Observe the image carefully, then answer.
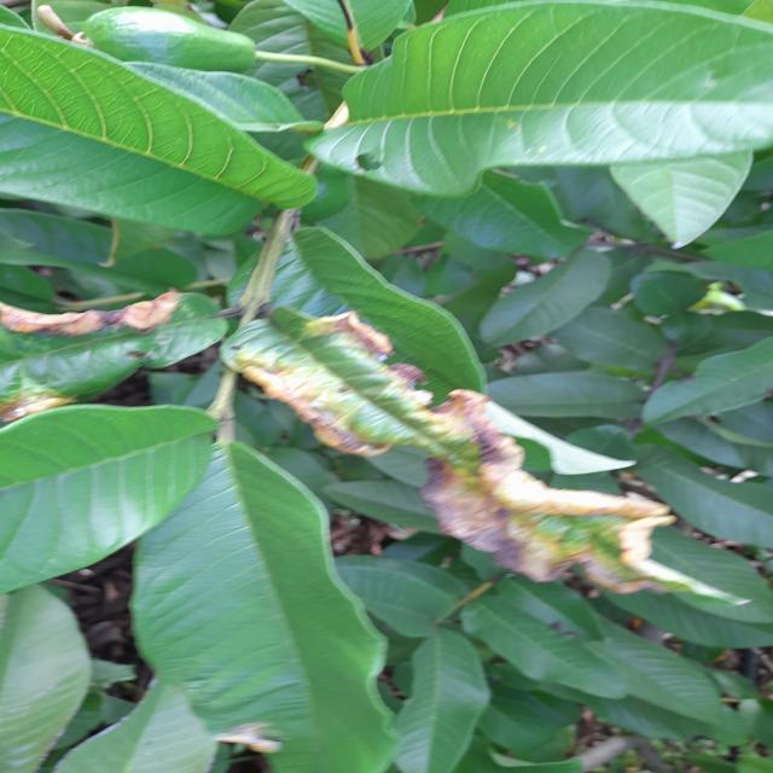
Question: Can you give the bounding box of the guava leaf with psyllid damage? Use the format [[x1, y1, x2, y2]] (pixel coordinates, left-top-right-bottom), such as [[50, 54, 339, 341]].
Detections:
[[214, 292, 745, 620]]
